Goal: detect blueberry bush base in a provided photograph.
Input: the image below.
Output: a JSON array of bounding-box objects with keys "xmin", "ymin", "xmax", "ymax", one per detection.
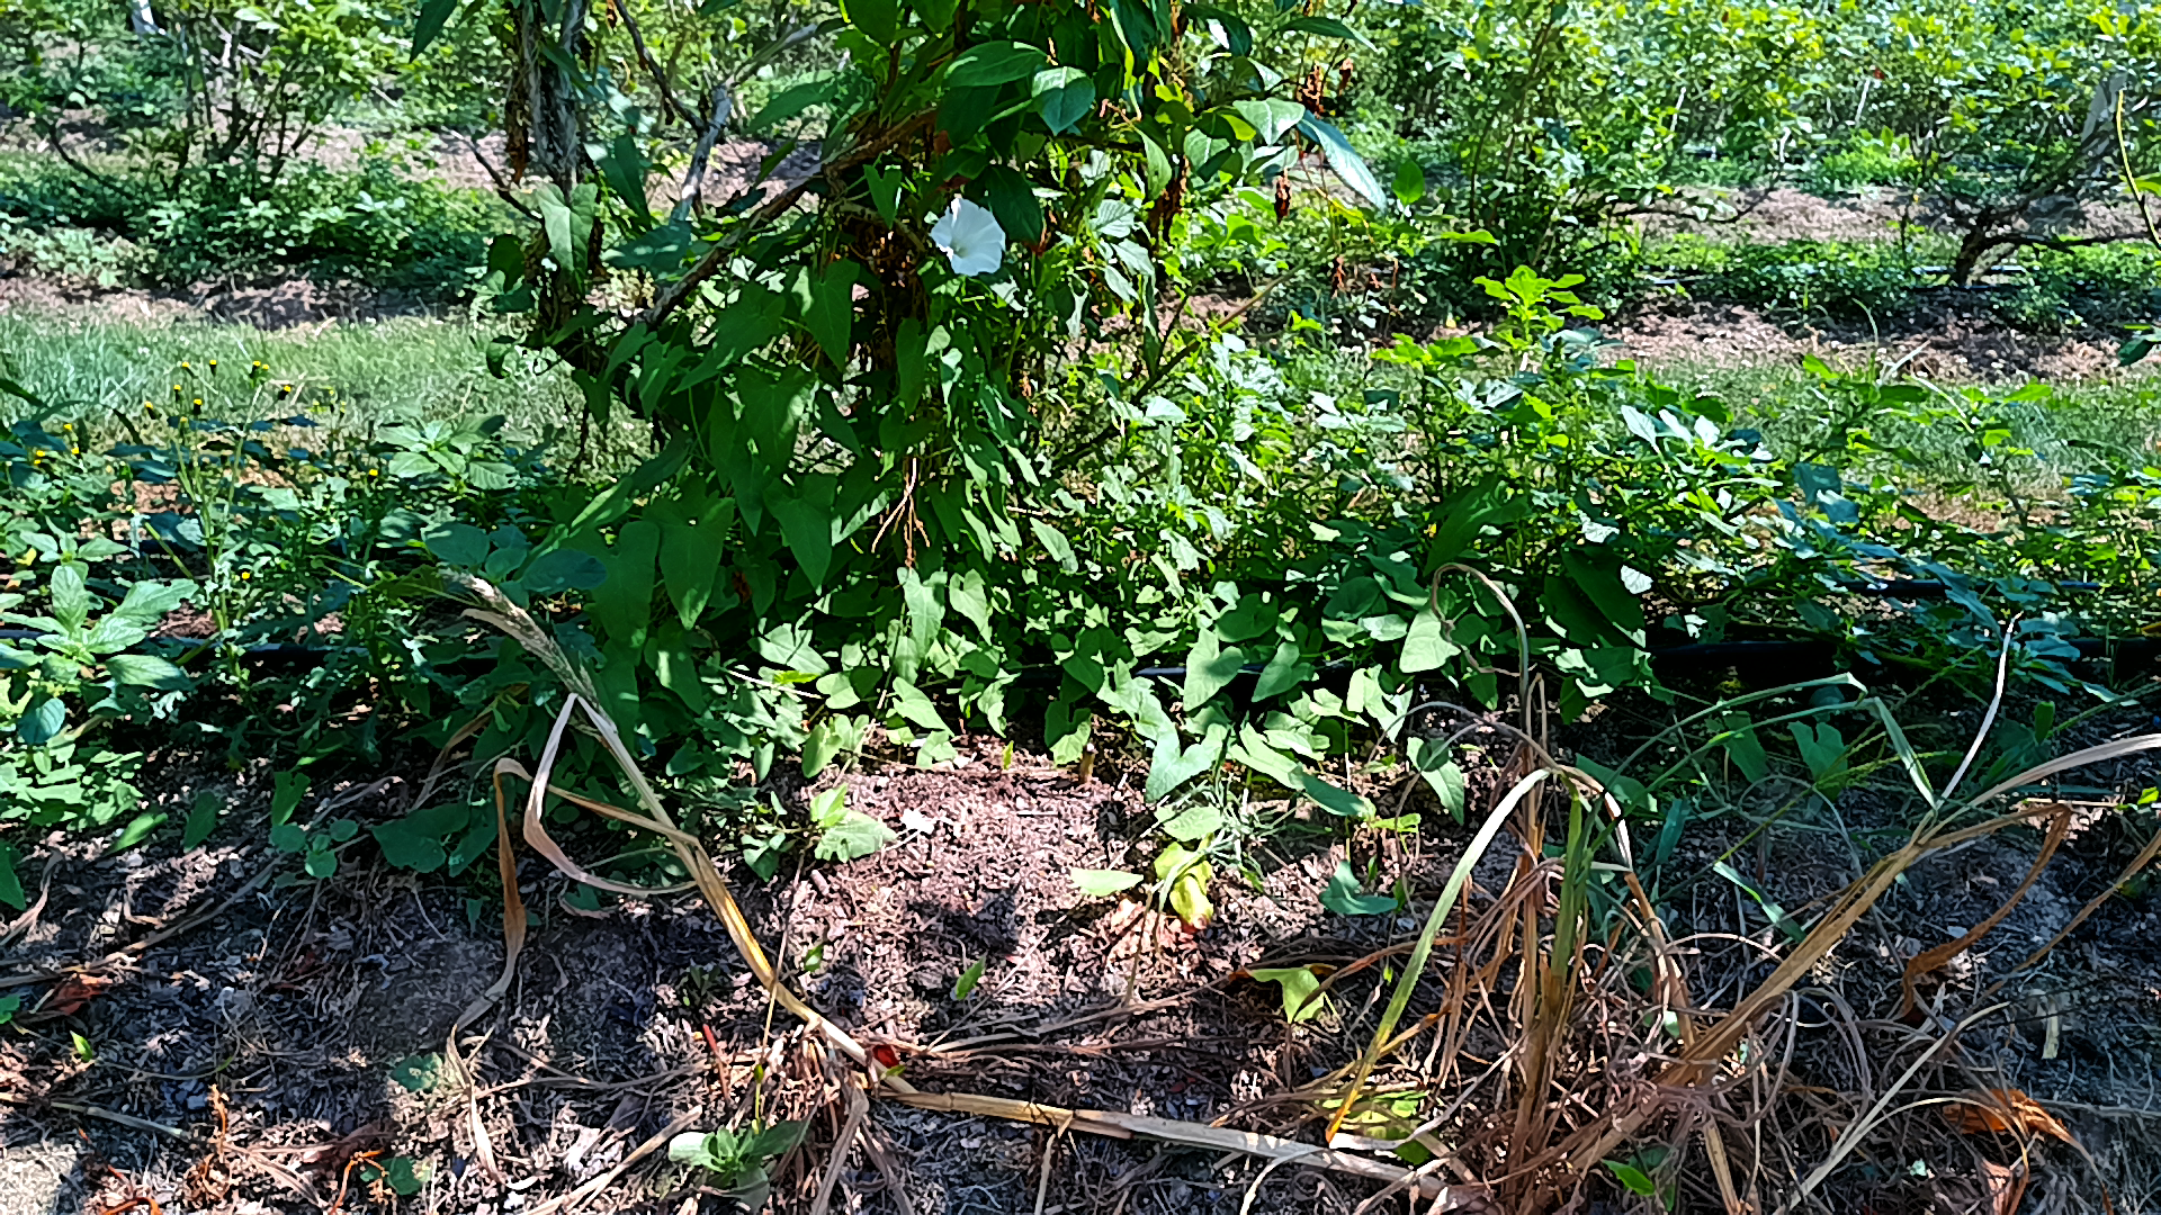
[{"xmin": 479, "ymin": 220, "xmax": 1121, "ymax": 716}]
